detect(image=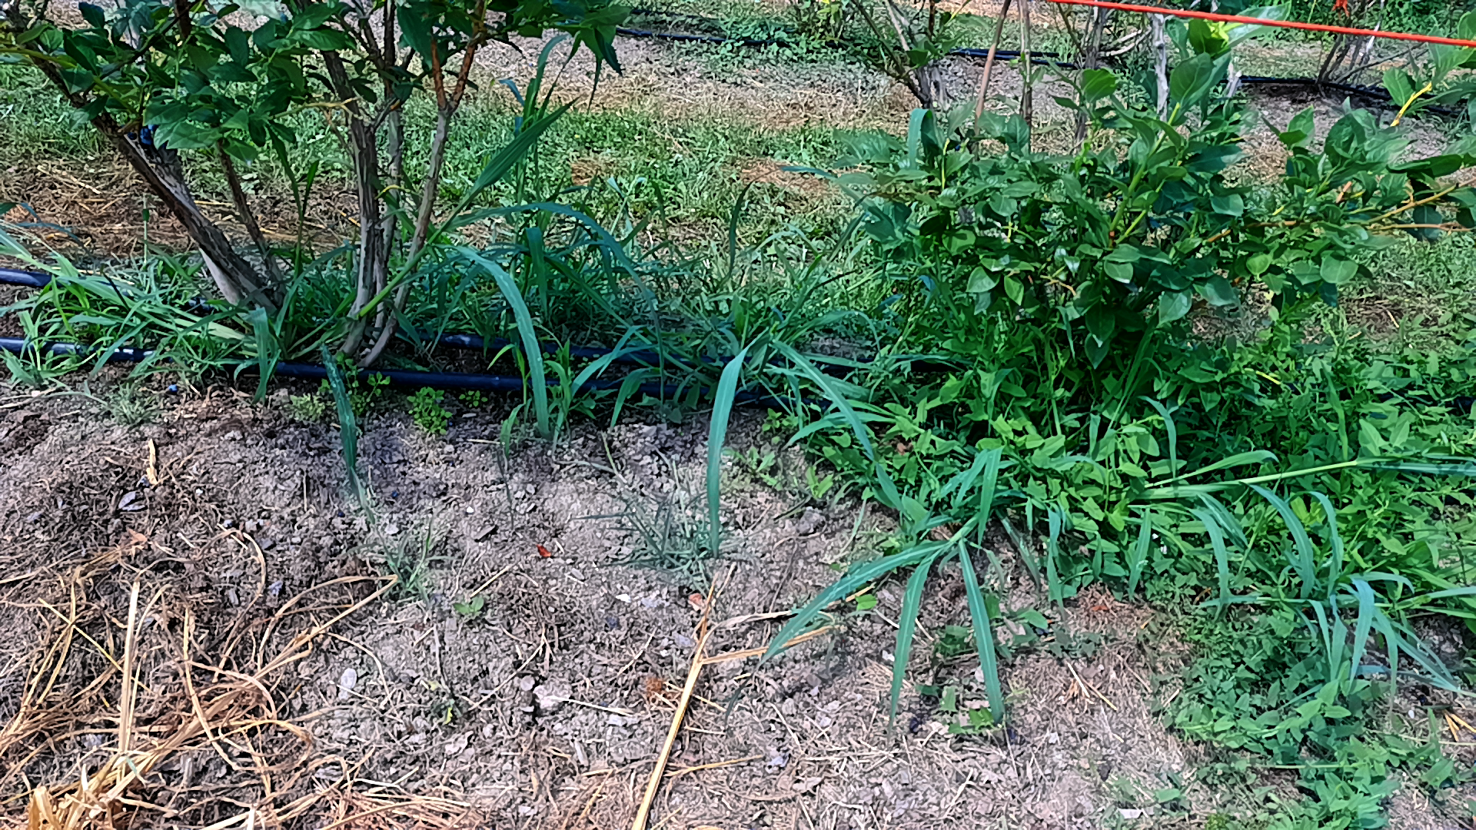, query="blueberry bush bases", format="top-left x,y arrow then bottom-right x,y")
152,188 -> 508,431
1042,16 -> 1138,76
1295,35 -> 1378,101
880,74 -> 1262,493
